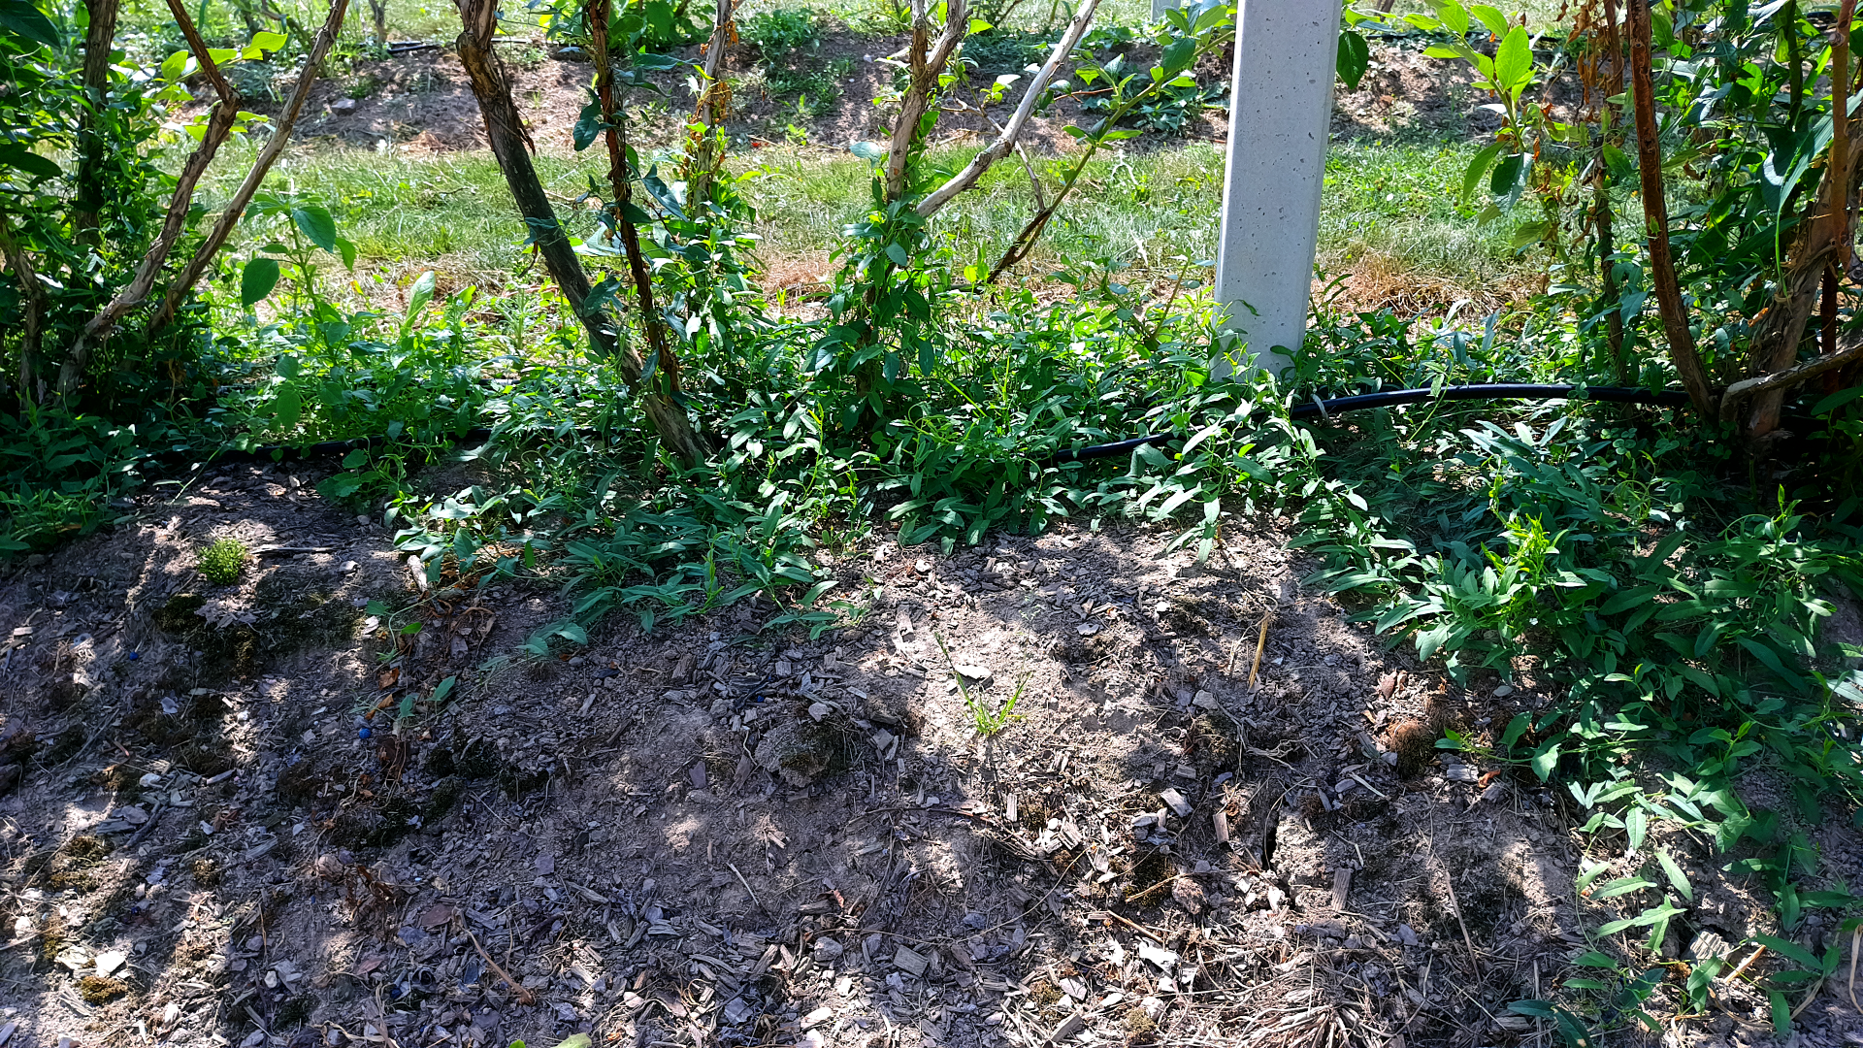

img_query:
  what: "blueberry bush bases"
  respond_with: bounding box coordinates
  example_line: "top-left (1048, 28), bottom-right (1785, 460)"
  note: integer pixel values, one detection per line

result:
top-left (0, 211), bottom-right (274, 516)
top-left (503, 210), bottom-right (943, 567)
top-left (1579, 208), bottom-right (1863, 579)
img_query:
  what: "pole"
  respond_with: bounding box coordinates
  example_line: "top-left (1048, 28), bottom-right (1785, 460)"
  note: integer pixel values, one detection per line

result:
top-left (1198, 29), bottom-right (1357, 384)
